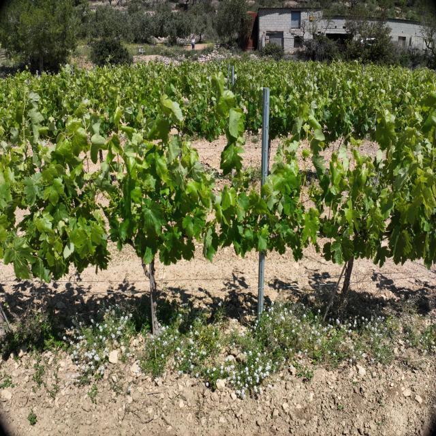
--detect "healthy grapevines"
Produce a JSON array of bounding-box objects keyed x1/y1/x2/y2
[
  {"x1": 17, "y1": 103, "x2": 264, "y2": 348},
  {"x1": 262, "y1": 118, "x2": 436, "y2": 329}
]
